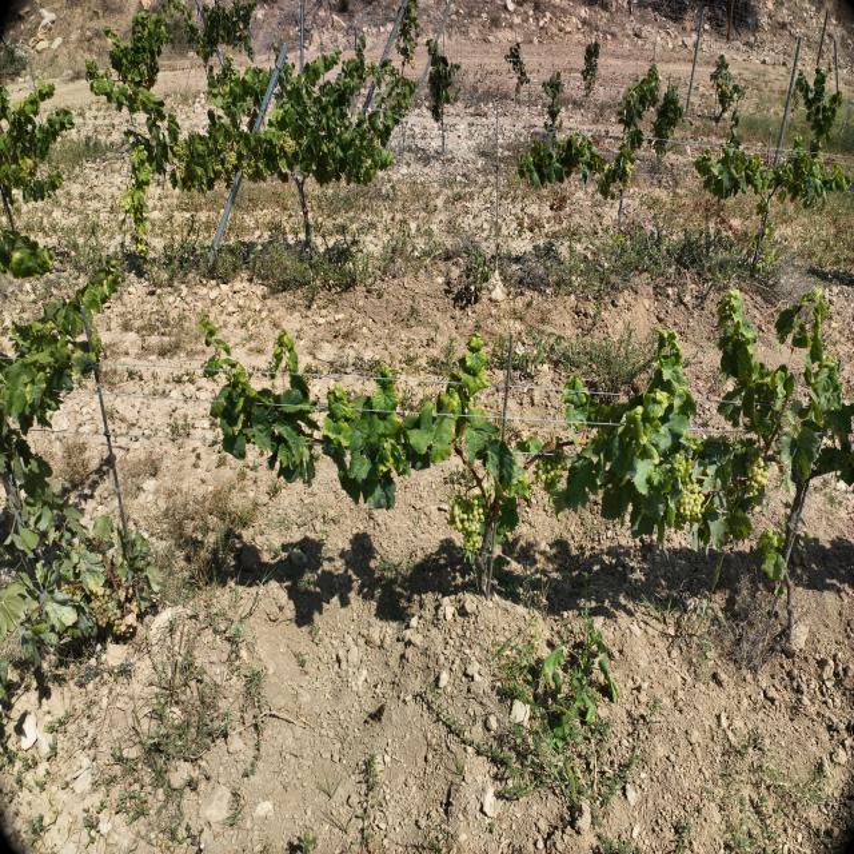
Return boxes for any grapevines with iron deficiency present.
[199,338,612,615]
[608,287,854,655]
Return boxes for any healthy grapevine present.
[0,263,149,706]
